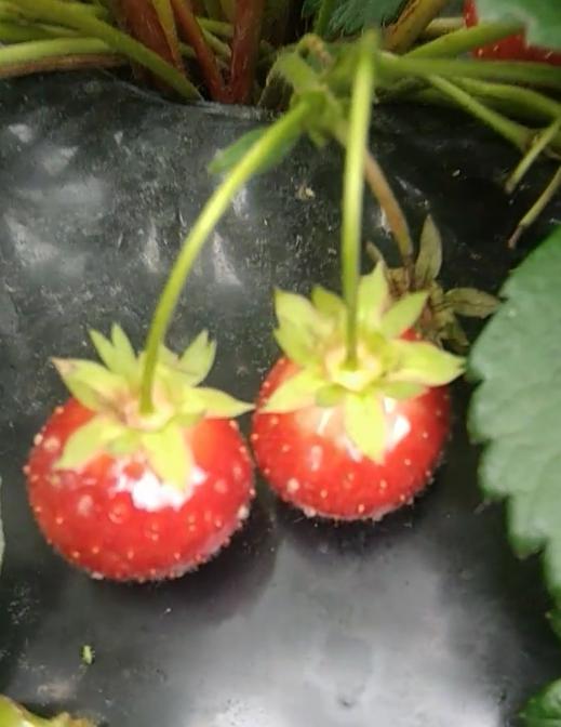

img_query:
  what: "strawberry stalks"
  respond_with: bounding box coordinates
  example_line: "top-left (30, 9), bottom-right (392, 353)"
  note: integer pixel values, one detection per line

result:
top-left (117, 208), bottom-right (224, 415)
top-left (325, 136), bottom-right (393, 393)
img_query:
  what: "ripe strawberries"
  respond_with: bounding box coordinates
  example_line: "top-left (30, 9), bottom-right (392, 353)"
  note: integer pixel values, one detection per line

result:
top-left (5, 366), bottom-right (248, 597)
top-left (235, 309), bottom-right (507, 528)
